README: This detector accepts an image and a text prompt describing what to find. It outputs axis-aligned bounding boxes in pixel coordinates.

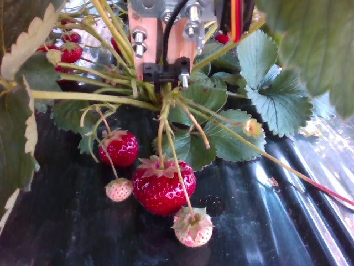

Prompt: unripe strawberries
[105,182,134,201]
[177,207,211,247]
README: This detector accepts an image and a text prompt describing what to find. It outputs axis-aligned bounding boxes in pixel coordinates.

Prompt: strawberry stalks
[173,184,194,224]
[107,158,121,189]
[154,111,170,183]
[96,109,115,139]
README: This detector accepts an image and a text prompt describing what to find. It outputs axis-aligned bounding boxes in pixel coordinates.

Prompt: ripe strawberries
[62,29,82,44]
[59,43,80,60]
[103,132,136,162]
[136,159,195,214]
